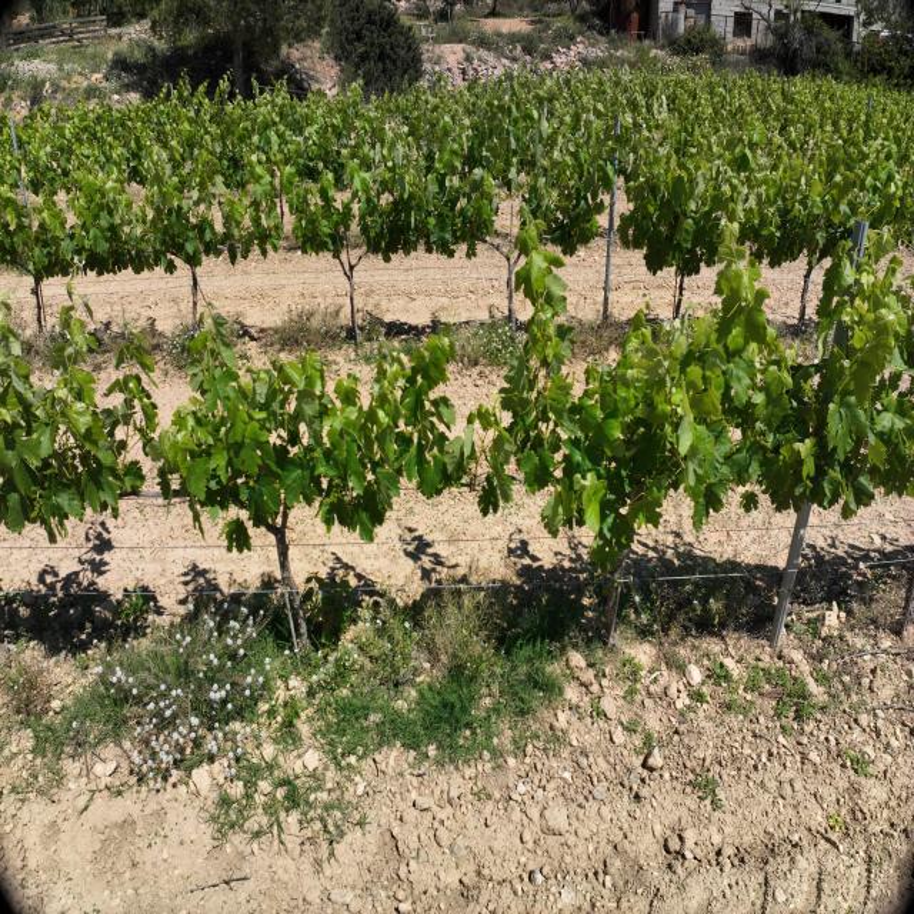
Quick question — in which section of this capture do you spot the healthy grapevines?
[139,305,471,666]
[0,314,143,638]
[480,280,911,661]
